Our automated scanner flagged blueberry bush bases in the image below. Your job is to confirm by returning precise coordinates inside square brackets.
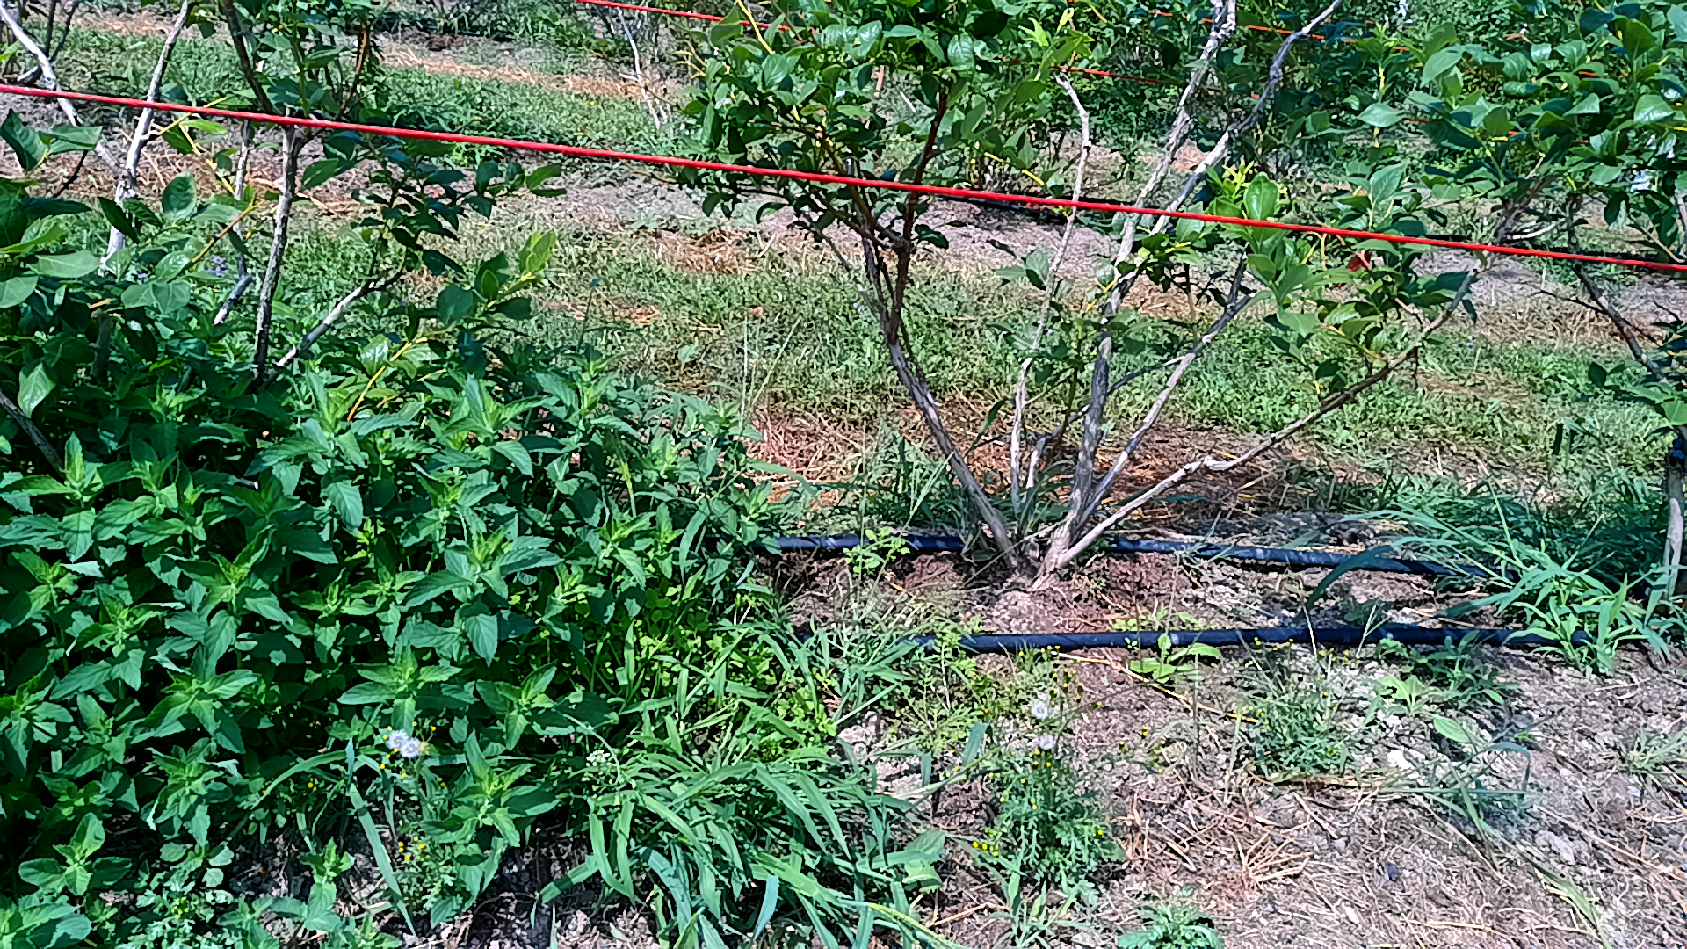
[869, 363, 1240, 639]
[7, 203, 389, 459]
